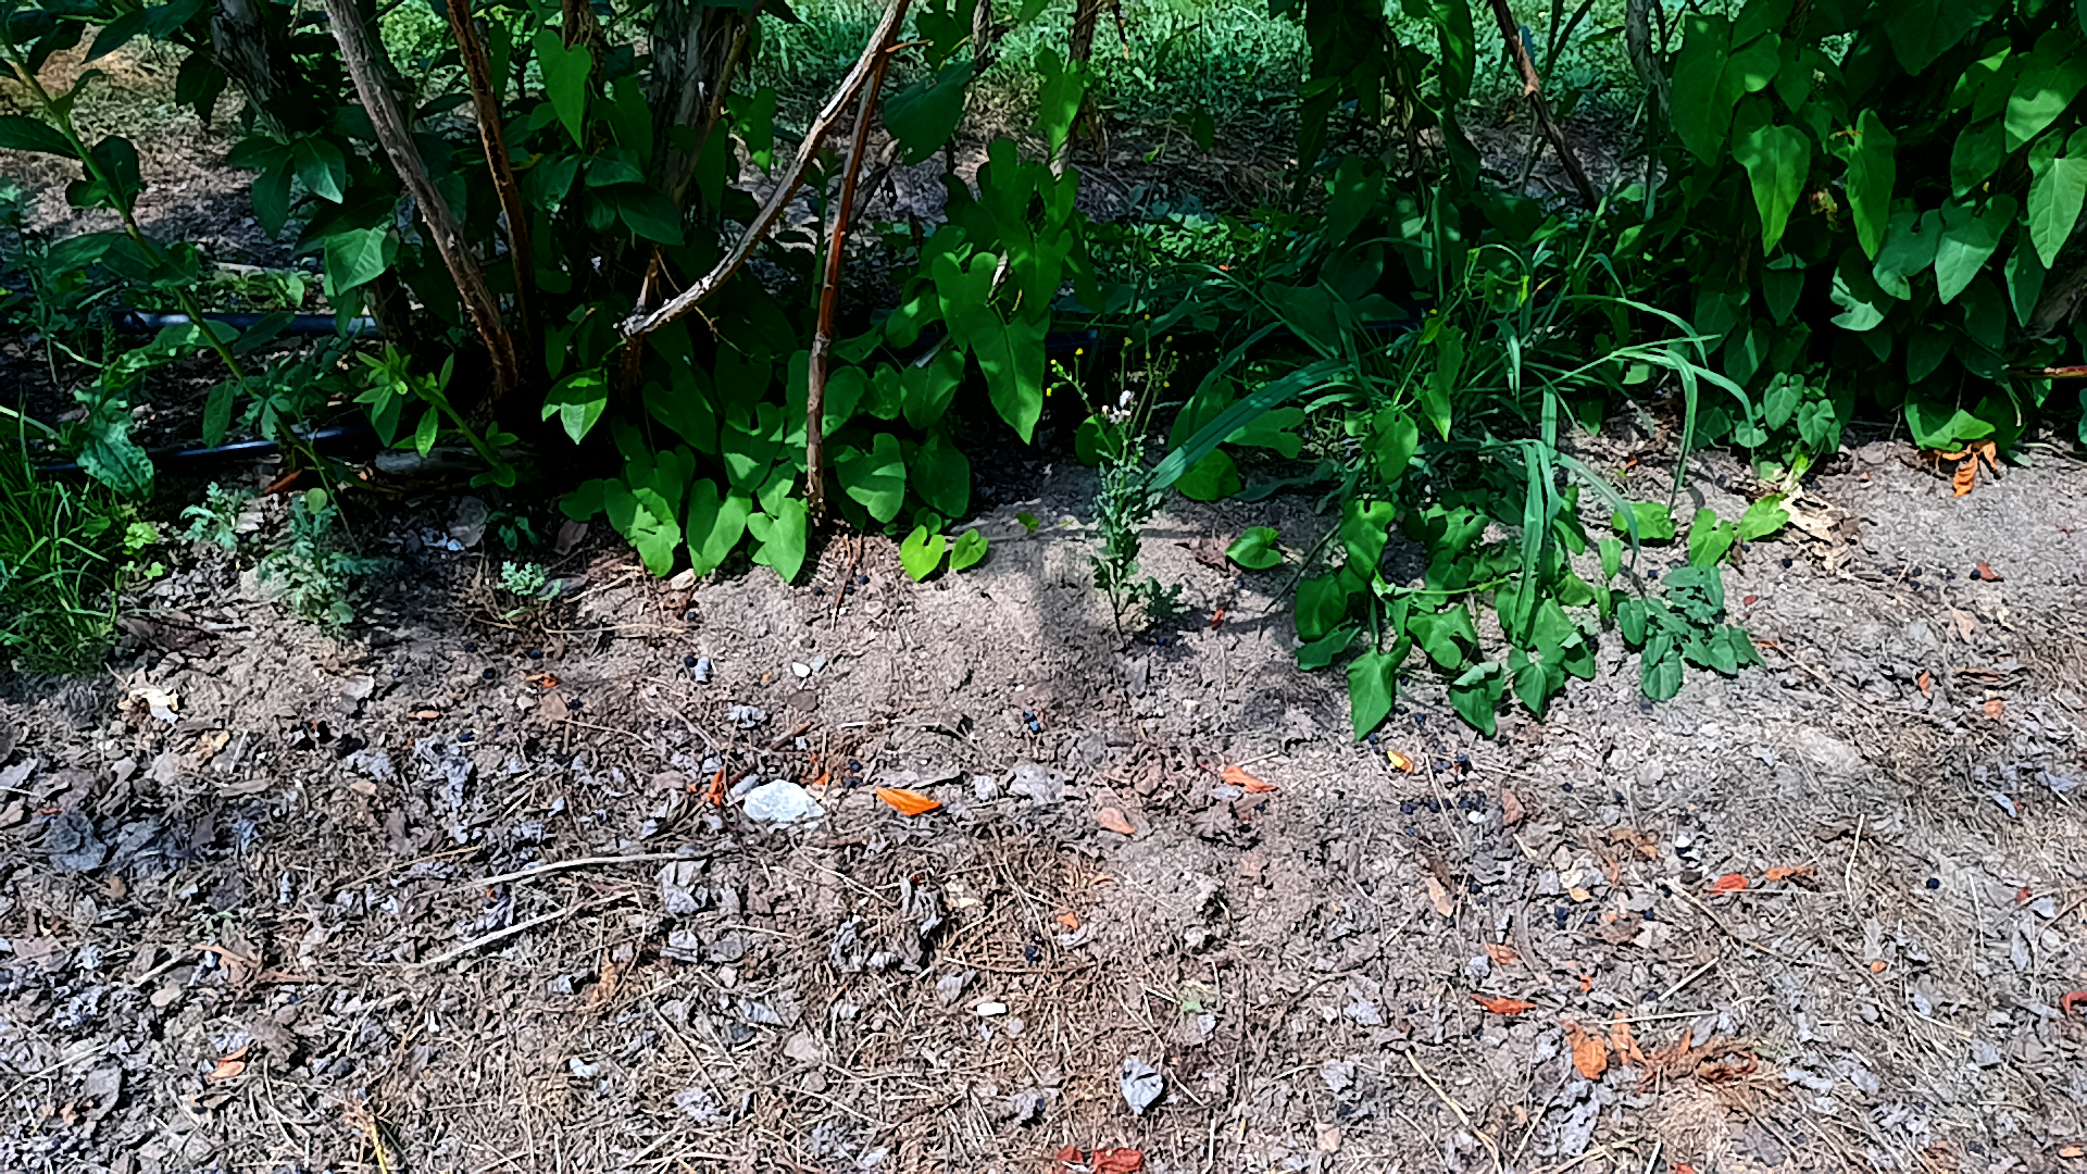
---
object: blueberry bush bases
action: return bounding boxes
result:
[337,171,823,576]
[1557,96,2087,513]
